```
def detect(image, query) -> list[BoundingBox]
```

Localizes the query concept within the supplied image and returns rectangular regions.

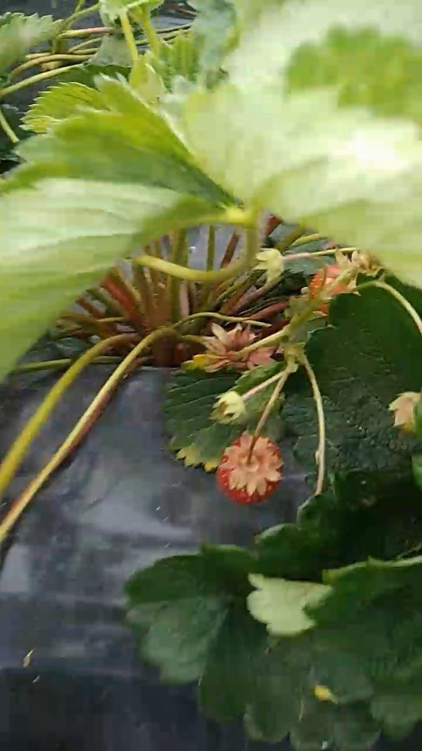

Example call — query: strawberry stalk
[239,411,267,468]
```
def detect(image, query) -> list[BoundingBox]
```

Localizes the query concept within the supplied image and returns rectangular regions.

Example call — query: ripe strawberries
[311,260,359,317]
[217,437,283,500]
